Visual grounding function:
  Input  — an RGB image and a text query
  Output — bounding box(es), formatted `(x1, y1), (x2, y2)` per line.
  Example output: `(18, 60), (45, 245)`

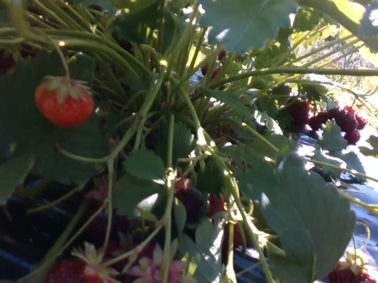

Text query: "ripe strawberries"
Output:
(200, 58), (223, 78)
(34, 72), (96, 129)
(55, 255), (120, 283)
(282, 98), (311, 128)
(312, 110), (367, 141)
(330, 264), (370, 283)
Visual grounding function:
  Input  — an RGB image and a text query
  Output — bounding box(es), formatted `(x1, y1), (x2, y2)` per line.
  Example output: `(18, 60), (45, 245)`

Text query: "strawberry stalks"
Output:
(96, 210), (116, 269)
(149, 224), (176, 283)
(58, 34), (78, 90)
(348, 95), (362, 115)
(349, 233), (361, 274)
